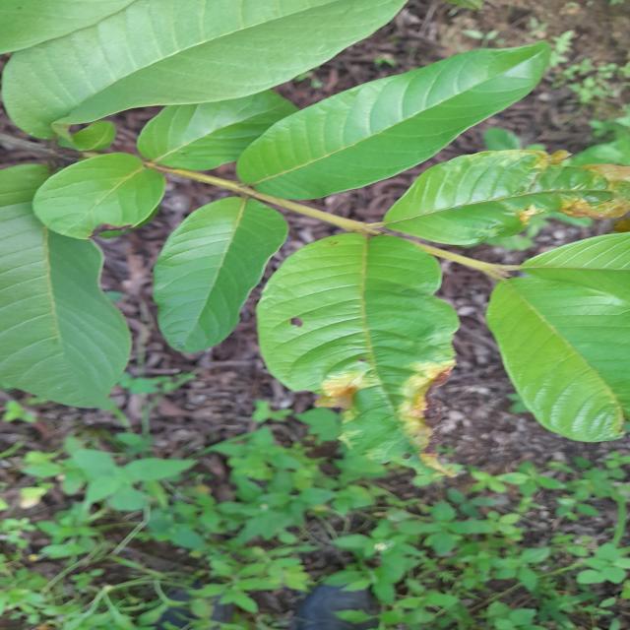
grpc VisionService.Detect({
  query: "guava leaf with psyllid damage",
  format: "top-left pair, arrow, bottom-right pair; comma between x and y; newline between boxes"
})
253,223 -> 477,484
